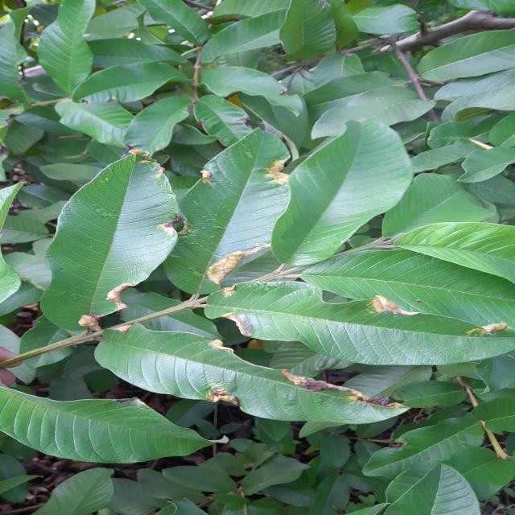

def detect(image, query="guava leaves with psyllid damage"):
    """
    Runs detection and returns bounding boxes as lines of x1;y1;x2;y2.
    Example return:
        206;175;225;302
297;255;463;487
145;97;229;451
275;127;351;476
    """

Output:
35;146;179;344
172;122;295;298
201;280;515;374
85;321;412;426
